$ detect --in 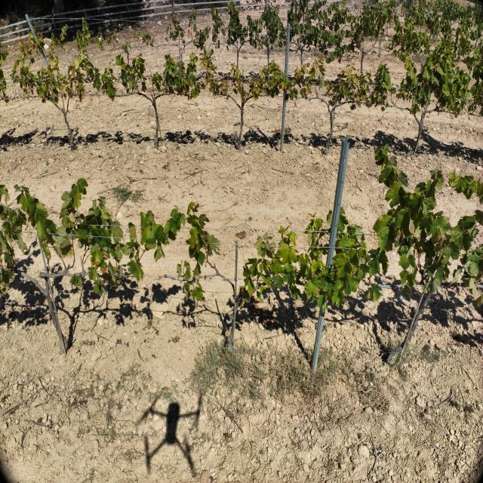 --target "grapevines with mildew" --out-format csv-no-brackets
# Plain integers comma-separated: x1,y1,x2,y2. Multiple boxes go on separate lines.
174,199,378,364
371,160,483,379
0,176,184,363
